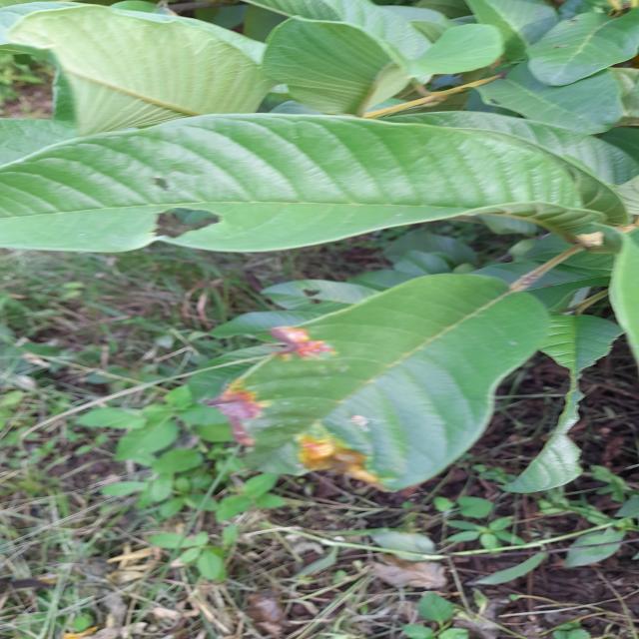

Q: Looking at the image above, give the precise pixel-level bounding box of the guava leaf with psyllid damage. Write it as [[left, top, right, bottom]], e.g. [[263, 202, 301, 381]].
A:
[[107, 275, 575, 512]]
